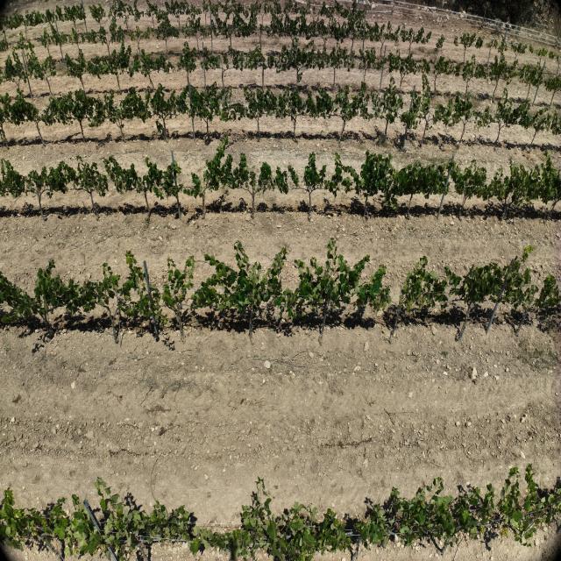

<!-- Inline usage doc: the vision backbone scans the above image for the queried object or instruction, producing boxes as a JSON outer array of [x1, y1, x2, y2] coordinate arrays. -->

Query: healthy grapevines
[[0, 255, 82, 344], [368, 254, 445, 349], [79, 248, 144, 349], [502, 244, 561, 342], [442, 257, 504, 348], [202, 239, 292, 350], [140, 249, 220, 352], [283, 235, 371, 350]]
